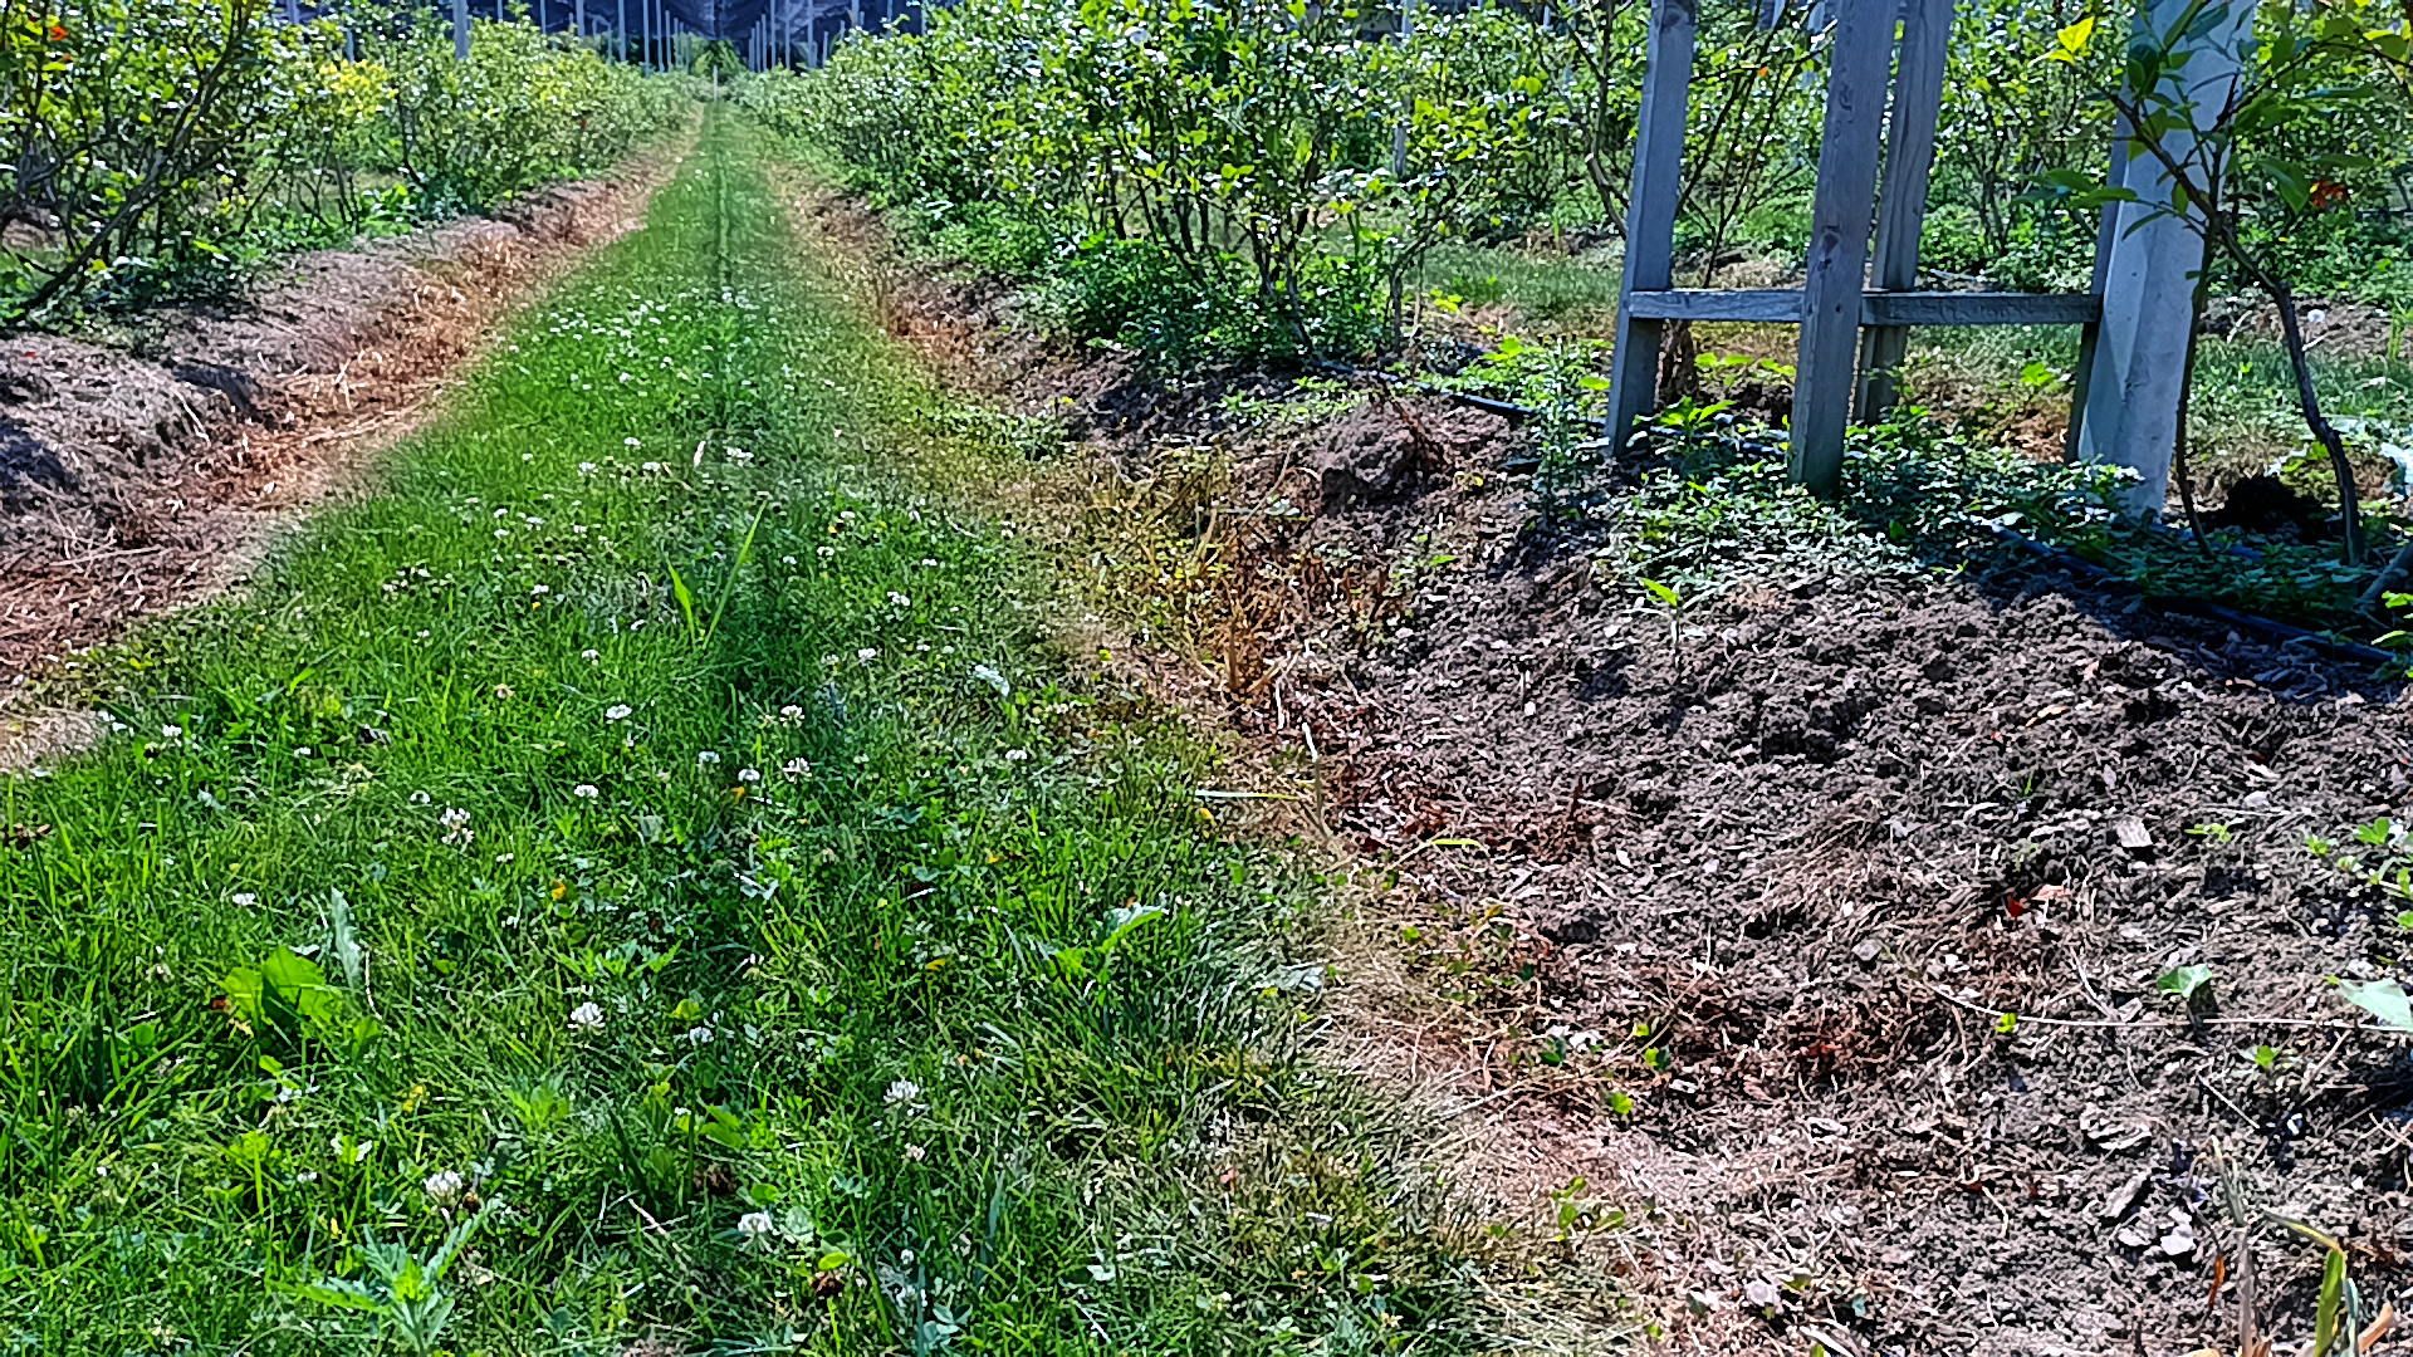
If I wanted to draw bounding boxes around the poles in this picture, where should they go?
[1792,9,1880,507]
[1609,8,1686,483]
[1889,0,1958,438]
[2066,14,2231,538]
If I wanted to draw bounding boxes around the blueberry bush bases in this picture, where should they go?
[1223,253,1401,387]
[68,212,246,346]
[2243,220,2387,595]
[285,177,396,262]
